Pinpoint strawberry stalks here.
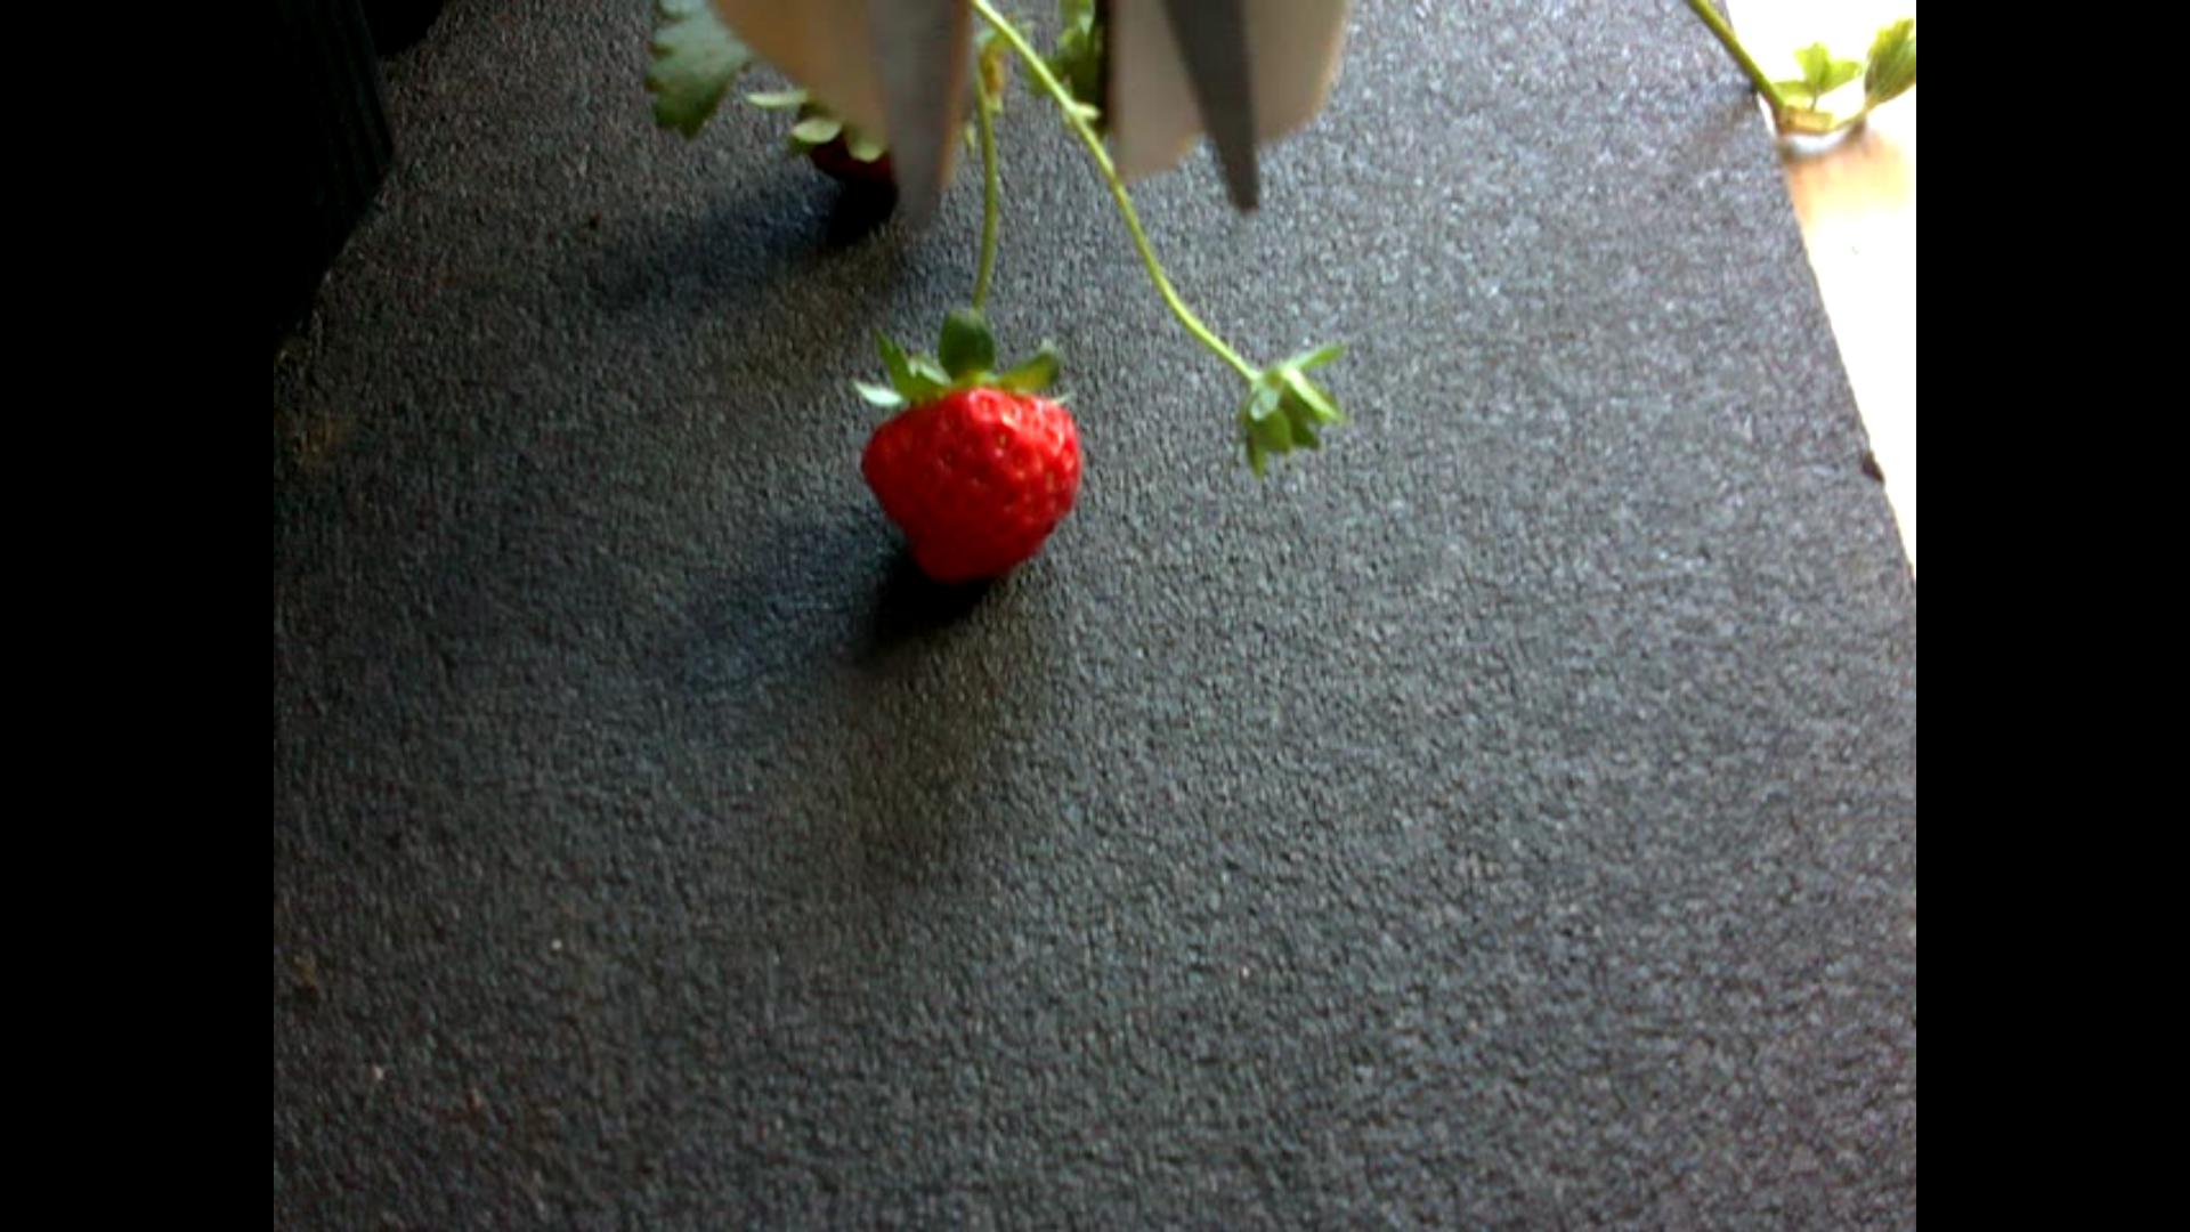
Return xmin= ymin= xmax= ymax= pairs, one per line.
xmin=1114 ymin=231 xmax=1283 ymax=394
xmin=963 ymin=44 xmax=1009 ymax=421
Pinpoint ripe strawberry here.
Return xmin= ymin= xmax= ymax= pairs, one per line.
xmin=831 ymin=377 xmax=1090 ymax=586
